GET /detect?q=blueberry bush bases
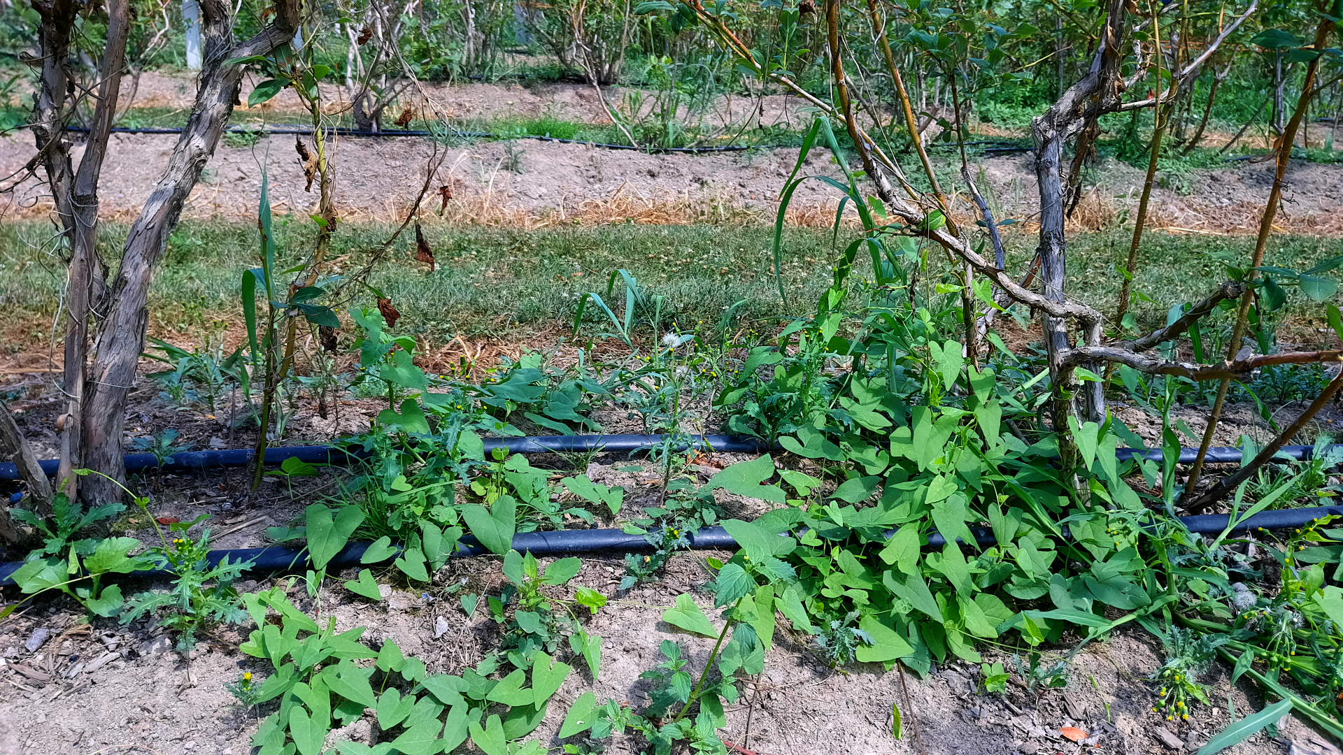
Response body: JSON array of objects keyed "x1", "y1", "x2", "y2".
[
  {"x1": 325, "y1": 89, "x2": 421, "y2": 159},
  {"x1": 549, "y1": 49, "x2": 636, "y2": 99},
  {"x1": 594, "y1": 105, "x2": 718, "y2": 173},
  {"x1": 2, "y1": 308, "x2": 190, "y2": 656},
  {"x1": 1143, "y1": 112, "x2": 1239, "y2": 181},
  {"x1": 926, "y1": 315, "x2": 1312, "y2": 635}
]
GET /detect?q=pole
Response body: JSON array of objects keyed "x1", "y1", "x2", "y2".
[{"x1": 178, "y1": 13, "x2": 216, "y2": 125}]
